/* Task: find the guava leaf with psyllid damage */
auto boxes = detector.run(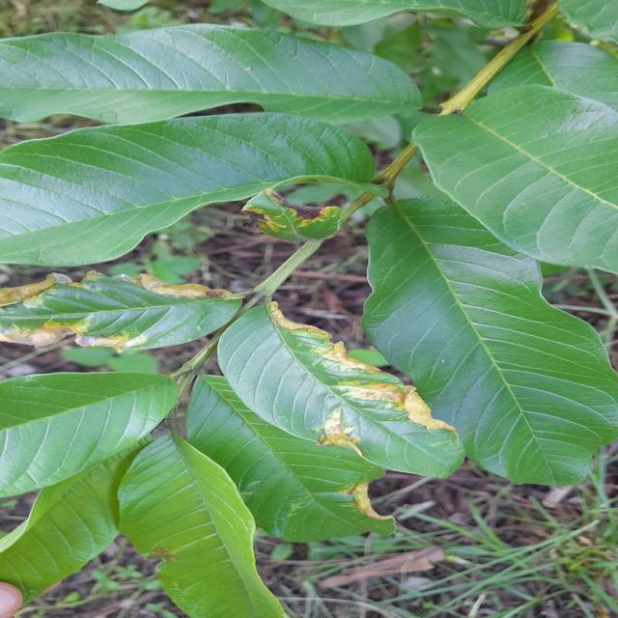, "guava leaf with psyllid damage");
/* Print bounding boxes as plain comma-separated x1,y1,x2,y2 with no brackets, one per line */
195,286,487,485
